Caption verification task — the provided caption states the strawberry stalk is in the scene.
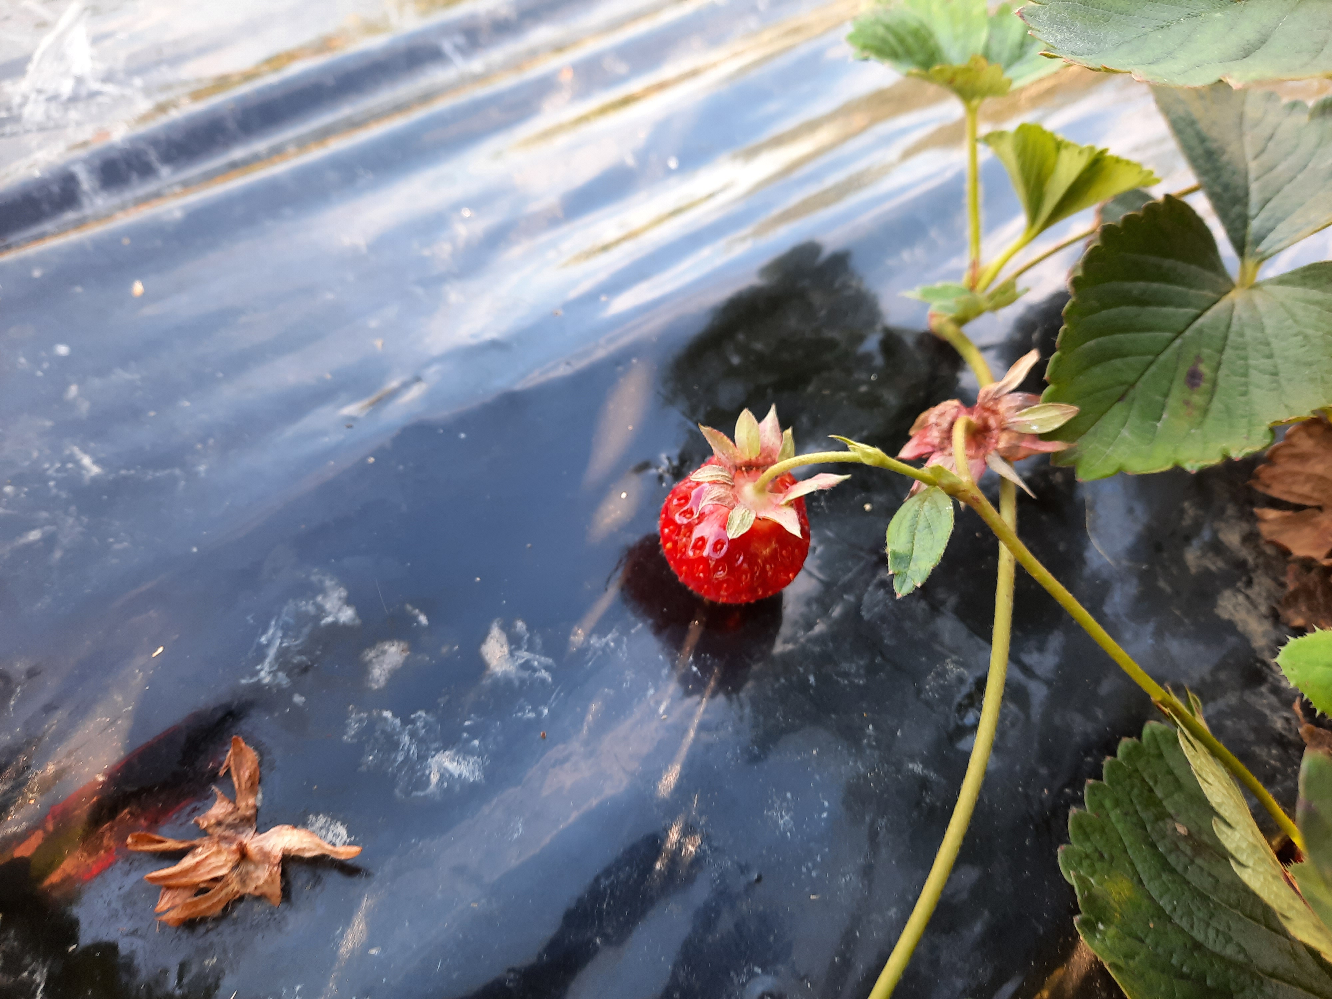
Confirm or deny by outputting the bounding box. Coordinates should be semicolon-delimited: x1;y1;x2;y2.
738;414;871;509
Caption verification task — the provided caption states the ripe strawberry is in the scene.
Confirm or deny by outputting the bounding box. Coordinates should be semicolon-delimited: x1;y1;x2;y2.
655;427;826;624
